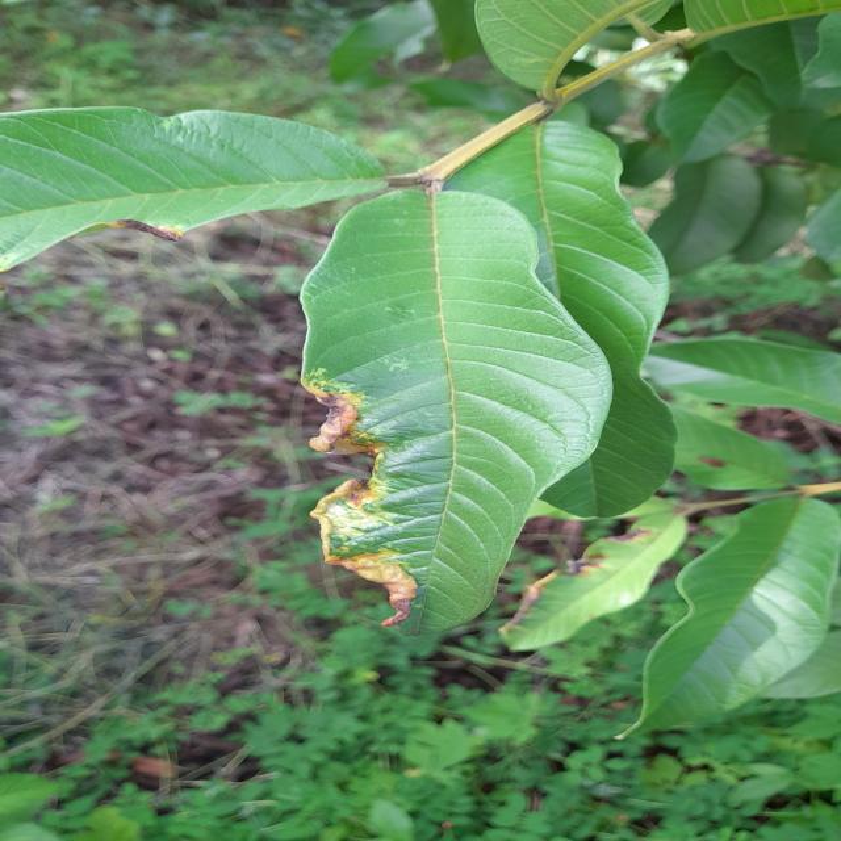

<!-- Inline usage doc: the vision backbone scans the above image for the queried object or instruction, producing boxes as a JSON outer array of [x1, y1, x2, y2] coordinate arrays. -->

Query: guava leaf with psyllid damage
[[273, 184, 624, 668]]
